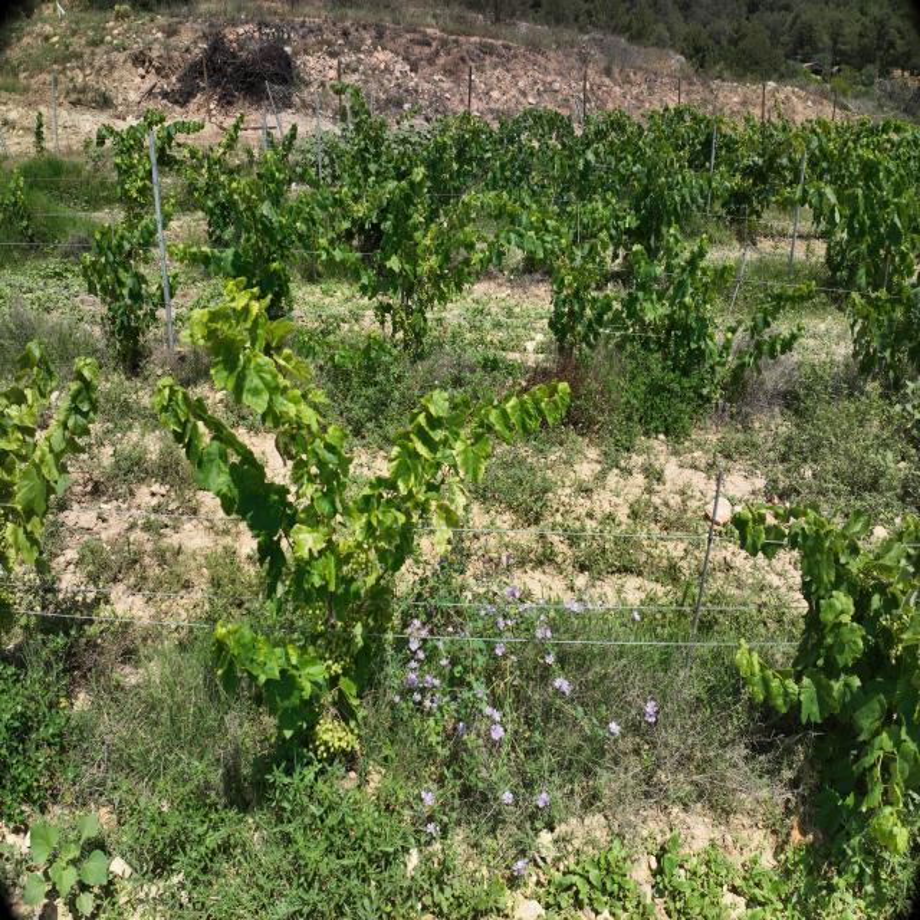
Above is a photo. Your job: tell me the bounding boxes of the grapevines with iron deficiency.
[144,272,579,808]
[0,326,106,701]
[722,483,920,891]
